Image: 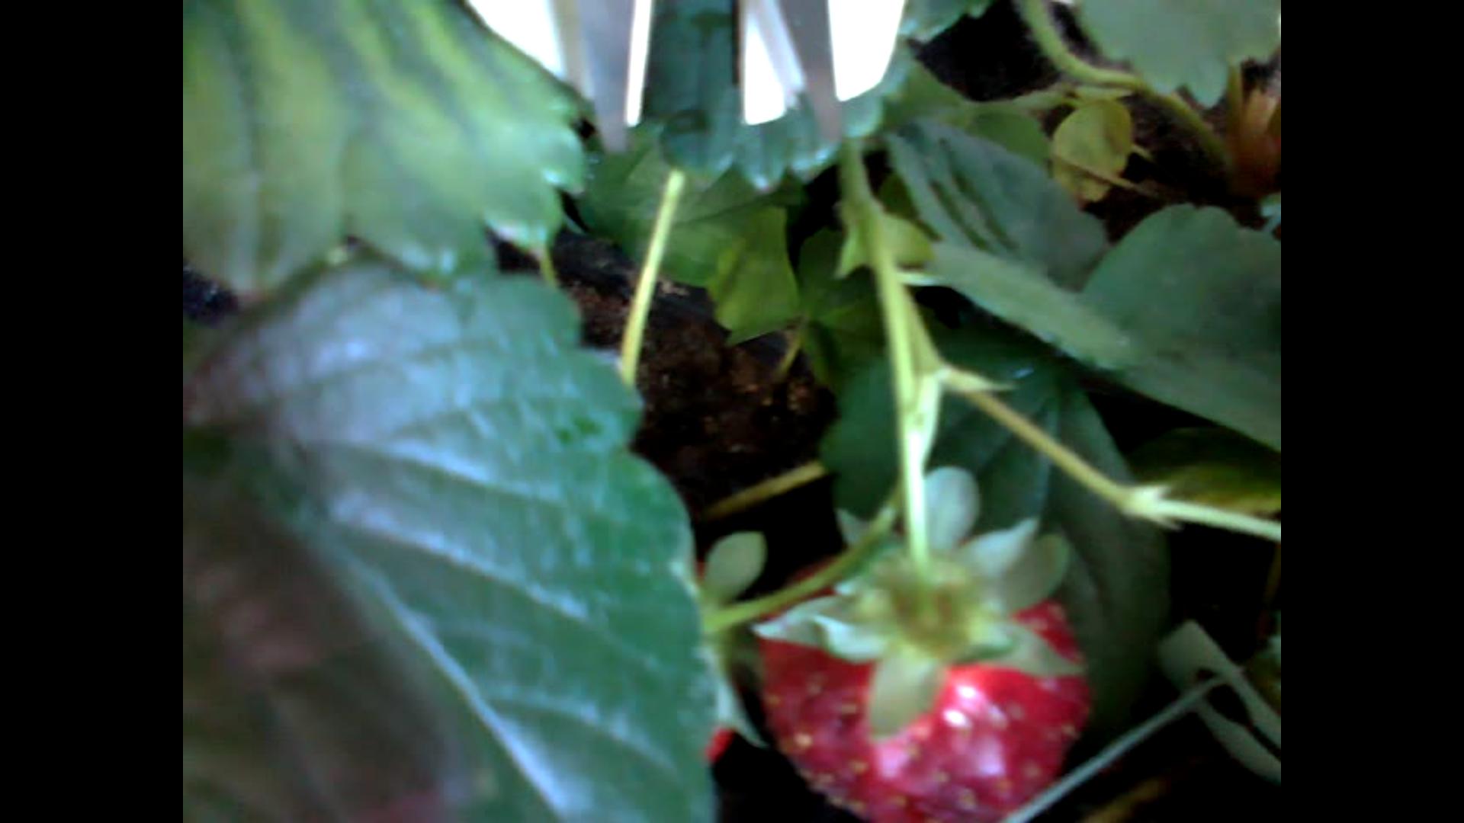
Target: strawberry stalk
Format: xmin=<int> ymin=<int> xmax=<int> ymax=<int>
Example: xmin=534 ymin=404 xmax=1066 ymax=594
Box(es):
xmin=832 ymin=148 xmax=978 ymax=659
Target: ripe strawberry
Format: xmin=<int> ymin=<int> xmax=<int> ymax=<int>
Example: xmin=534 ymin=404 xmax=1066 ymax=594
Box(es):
xmin=751 ymin=473 xmax=1112 ymax=823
